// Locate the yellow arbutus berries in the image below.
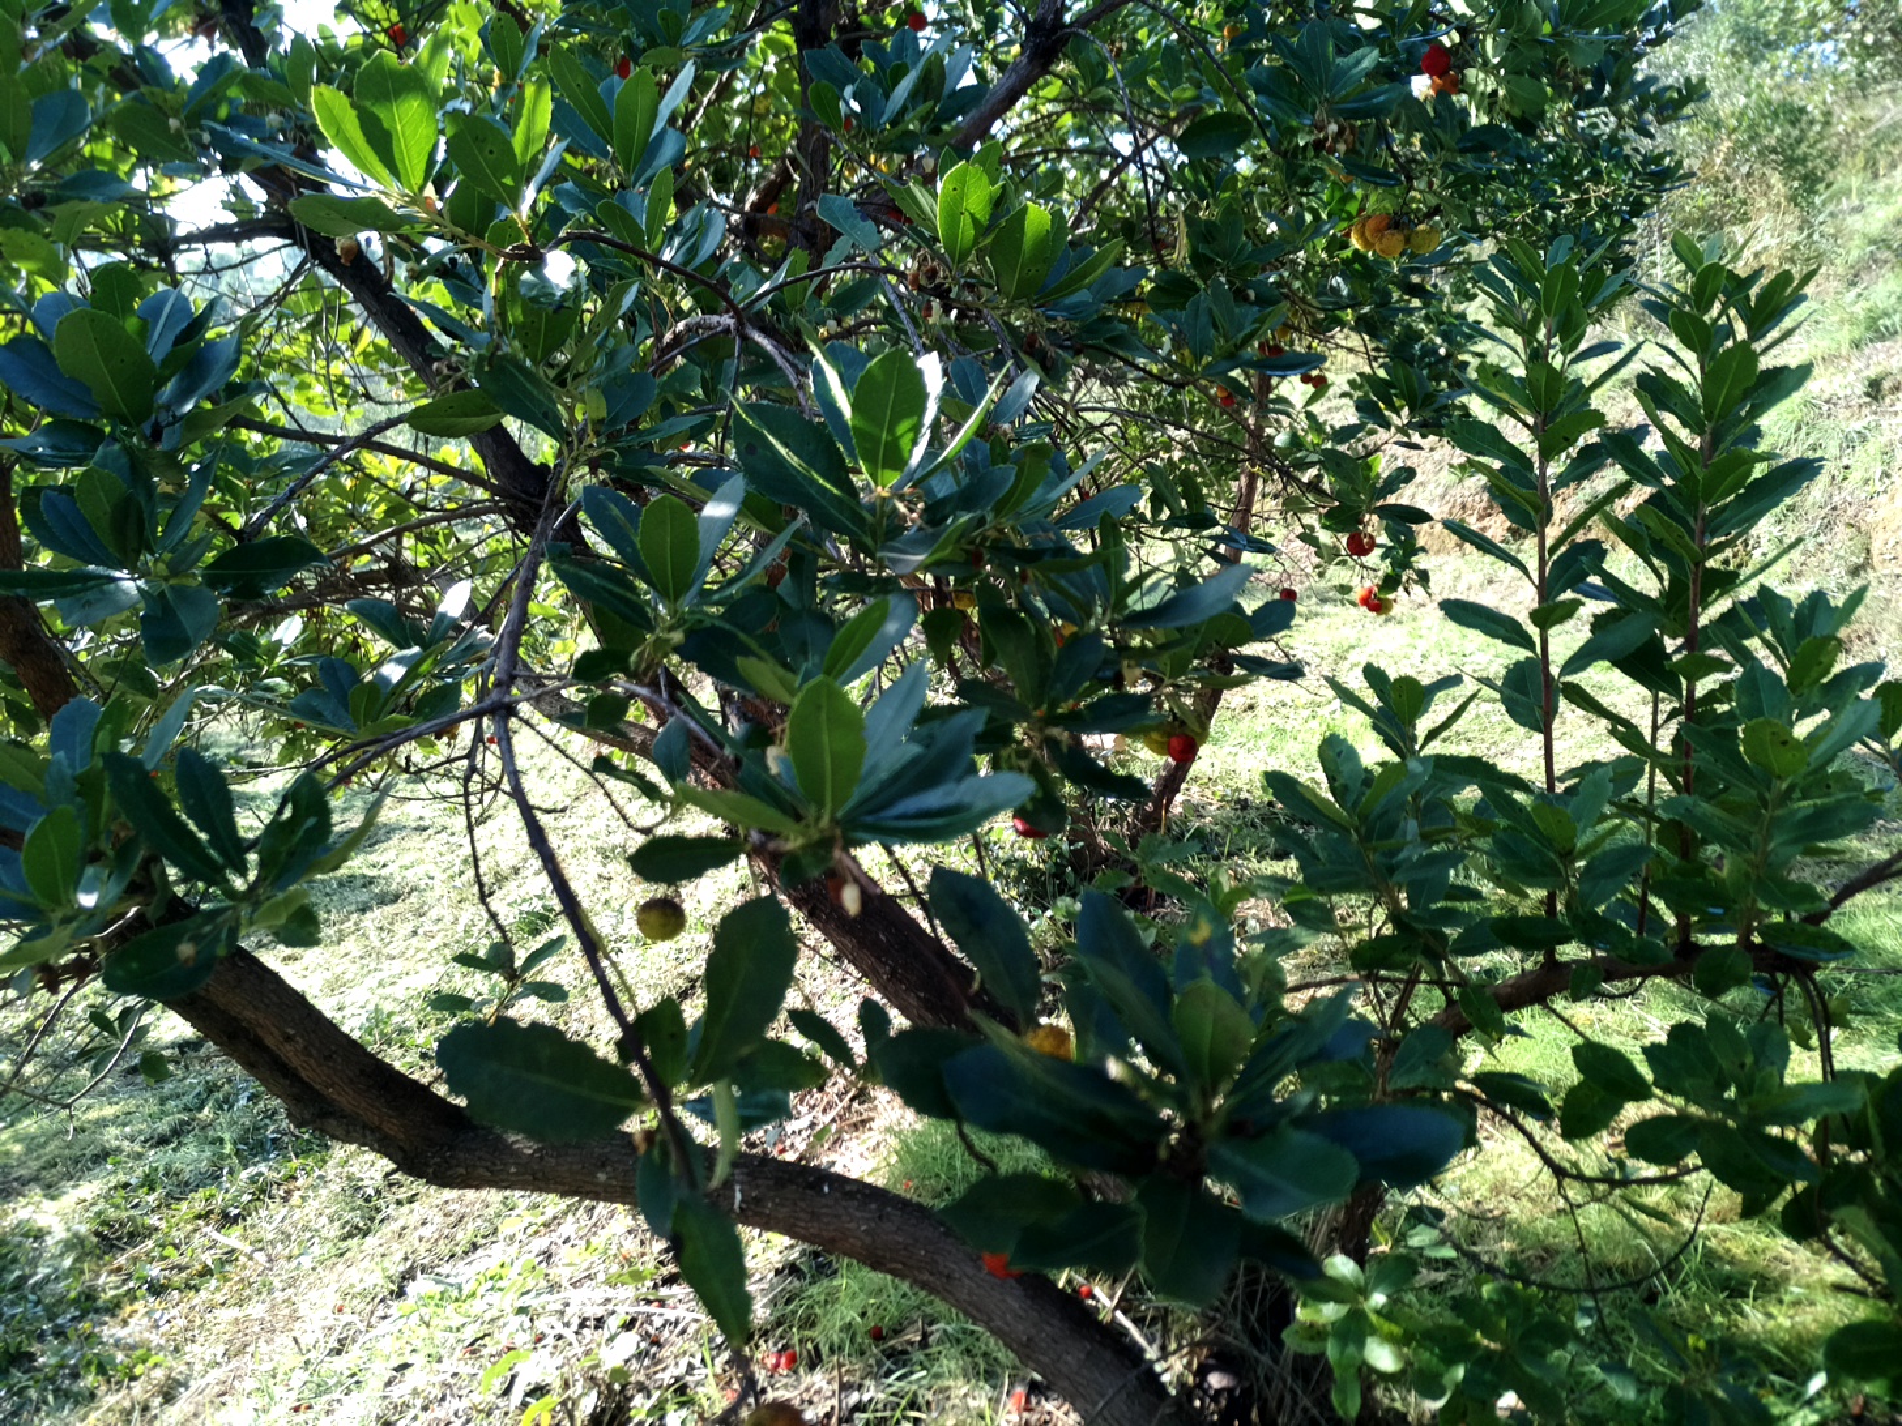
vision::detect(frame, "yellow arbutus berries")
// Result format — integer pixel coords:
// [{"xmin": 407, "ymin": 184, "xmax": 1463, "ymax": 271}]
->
[
  {"xmin": 1224, "ymin": 24, "xmax": 1241, "ymax": 41},
  {"xmin": 1025, "ymin": 1024, "xmax": 1073, "ymax": 1063},
  {"xmin": 1377, "ymin": 229, "xmax": 1405, "ymax": 257},
  {"xmin": 1365, "ymin": 214, "xmax": 1393, "ymax": 241},
  {"xmin": 1277, "ymin": 325, "xmax": 1289, "ymax": 338},
  {"xmin": 1217, "ymin": 385, "xmax": 1229, "ymax": 397},
  {"xmin": 1351, "ymin": 222, "xmax": 1375, "ymax": 251}
]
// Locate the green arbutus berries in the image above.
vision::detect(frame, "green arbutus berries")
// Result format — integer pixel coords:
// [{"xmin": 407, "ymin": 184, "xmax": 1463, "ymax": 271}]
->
[
  {"xmin": 1410, "ymin": 223, "xmax": 1439, "ymax": 254},
  {"xmin": 1377, "ymin": 596, "xmax": 1393, "ymax": 614},
  {"xmin": 637, "ymin": 898, "xmax": 689, "ymax": 942}
]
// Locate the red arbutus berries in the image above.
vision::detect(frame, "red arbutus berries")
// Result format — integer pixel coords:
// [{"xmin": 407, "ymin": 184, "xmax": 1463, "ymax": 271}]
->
[
  {"xmin": 1222, "ymin": 392, "xmax": 1235, "ymax": 407},
  {"xmin": 1011, "ymin": 811, "xmax": 1049, "ymax": 841},
  {"xmin": 1367, "ymin": 598, "xmax": 1381, "ymax": 612},
  {"xmin": 1422, "ymin": 45, "xmax": 1451, "ymax": 77},
  {"xmin": 908, "ymin": 12, "xmax": 927, "ymax": 31},
  {"xmin": 844, "ymin": 116, "xmax": 853, "ymax": 131},
  {"xmin": 1346, "ymin": 529, "xmax": 1376, "ymax": 556},
  {"xmin": 749, "ymin": 144, "xmax": 761, "ymax": 157},
  {"xmin": 1432, "ymin": 70, "xmax": 1459, "ymax": 96},
  {"xmin": 1312, "ymin": 374, "xmax": 1328, "ymax": 389},
  {"xmin": 1167, "ymin": 732, "xmax": 1198, "ymax": 763},
  {"xmin": 1280, "ymin": 587, "xmax": 1297, "ymax": 602},
  {"xmin": 1269, "ymin": 345, "xmax": 1284, "ymax": 358},
  {"xmin": 979, "ymin": 1248, "xmax": 1026, "ymax": 1282},
  {"xmin": 617, "ymin": 56, "xmax": 630, "ymax": 80},
  {"xmin": 1357, "ymin": 587, "xmax": 1373, "ymax": 606},
  {"xmin": 1301, "ymin": 373, "xmax": 1312, "ymax": 384},
  {"xmin": 766, "ymin": 201, "xmax": 780, "ymax": 216},
  {"xmin": 387, "ymin": 24, "xmax": 410, "ymax": 47}
]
